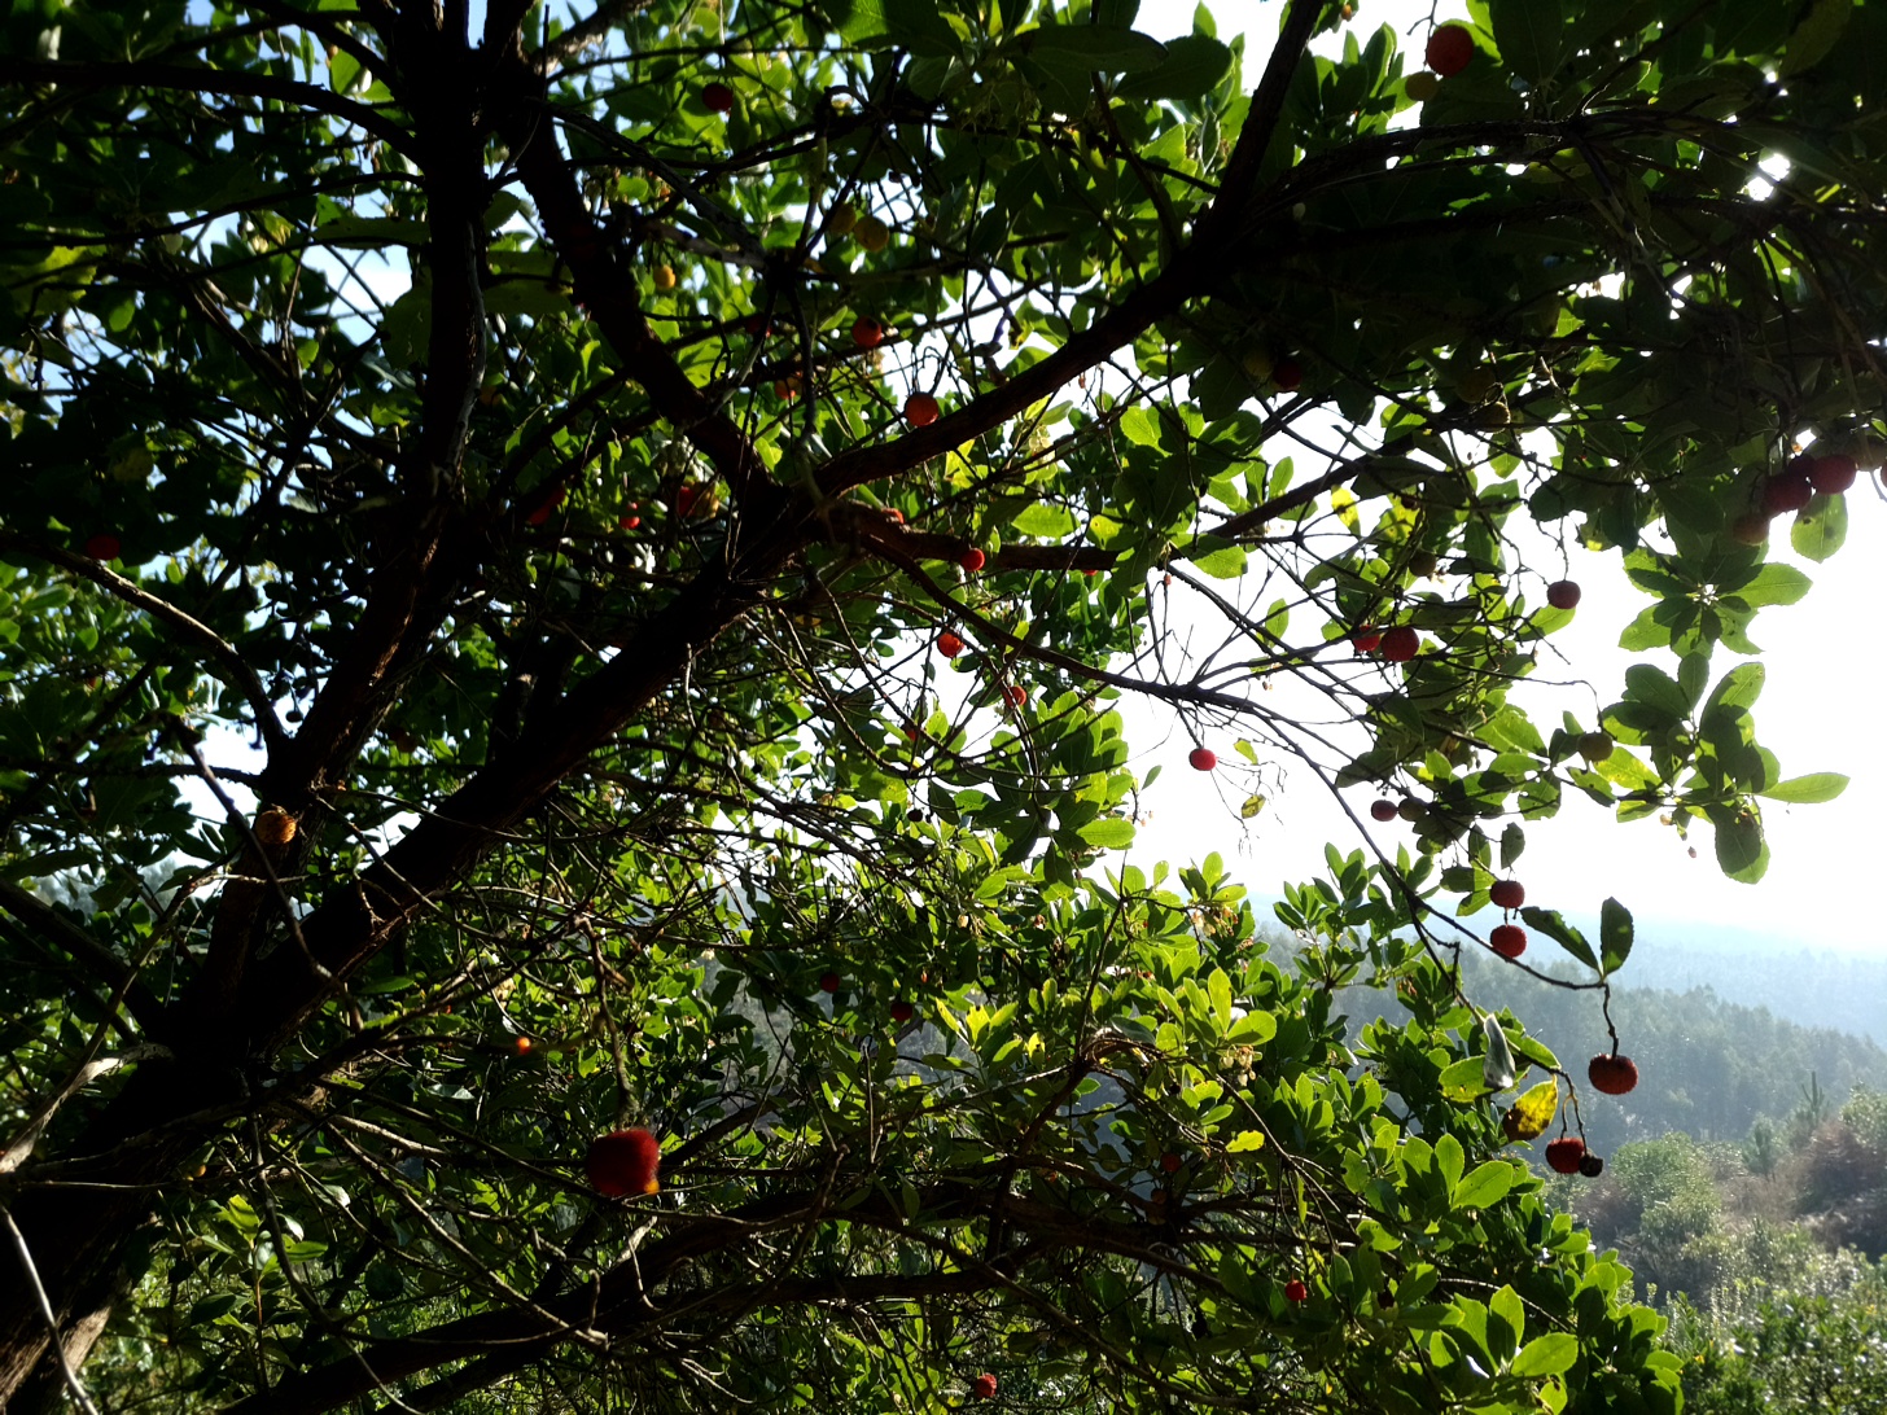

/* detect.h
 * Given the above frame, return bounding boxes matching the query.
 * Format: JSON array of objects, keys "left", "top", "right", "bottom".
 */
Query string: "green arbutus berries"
[
  {"left": 822, "top": 199, "right": 856, "bottom": 233},
  {"left": 1407, "top": 71, "right": 1439, "bottom": 100},
  {"left": 1399, "top": 797, "right": 1425, "bottom": 822},
  {"left": 852, "top": 214, "right": 896, "bottom": 256},
  {"left": 1411, "top": 551, "right": 1438, "bottom": 577},
  {"left": 1580, "top": 732, "right": 1613, "bottom": 762}
]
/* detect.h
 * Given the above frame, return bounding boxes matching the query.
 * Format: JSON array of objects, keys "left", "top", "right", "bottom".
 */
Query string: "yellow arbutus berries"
[
  {"left": 652, "top": 261, "right": 678, "bottom": 289},
  {"left": 1734, "top": 513, "right": 1769, "bottom": 545},
  {"left": 257, "top": 810, "right": 300, "bottom": 845}
]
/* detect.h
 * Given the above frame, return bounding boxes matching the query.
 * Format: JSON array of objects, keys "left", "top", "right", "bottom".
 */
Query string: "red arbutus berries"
[
  {"left": 1160, "top": 1152, "right": 1183, "bottom": 1174},
  {"left": 1187, "top": 746, "right": 1218, "bottom": 772},
  {"left": 905, "top": 391, "right": 939, "bottom": 427},
  {"left": 1381, "top": 624, "right": 1420, "bottom": 660},
  {"left": 1545, "top": 1136, "right": 1583, "bottom": 1175},
  {"left": 1547, "top": 579, "right": 1581, "bottom": 609},
  {"left": 1004, "top": 685, "right": 1026, "bottom": 708},
  {"left": 1371, "top": 799, "right": 1398, "bottom": 822},
  {"left": 1425, "top": 24, "right": 1476, "bottom": 76},
  {"left": 1490, "top": 925, "right": 1526, "bottom": 959},
  {"left": 1768, "top": 472, "right": 1811, "bottom": 511},
  {"left": 1489, "top": 879, "right": 1526, "bottom": 909},
  {"left": 853, "top": 317, "right": 885, "bottom": 346},
  {"left": 1810, "top": 455, "right": 1856, "bottom": 492},
  {"left": 618, "top": 497, "right": 643, "bottom": 531},
  {"left": 1353, "top": 624, "right": 1380, "bottom": 651},
  {"left": 938, "top": 631, "right": 963, "bottom": 657},
  {"left": 588, "top": 1128, "right": 663, "bottom": 1199},
  {"left": 1588, "top": 1050, "right": 1638, "bottom": 1095},
  {"left": 1284, "top": 1280, "right": 1308, "bottom": 1302},
  {"left": 973, "top": 1373, "right": 999, "bottom": 1398},
  {"left": 962, "top": 548, "right": 985, "bottom": 571}
]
